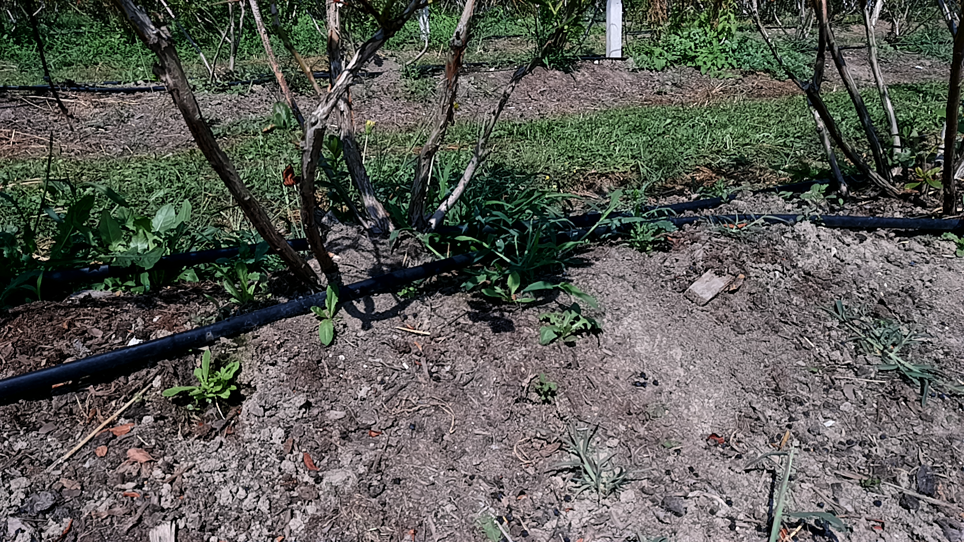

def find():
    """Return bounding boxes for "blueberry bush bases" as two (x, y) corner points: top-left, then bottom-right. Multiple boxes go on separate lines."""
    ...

(233, 160), (518, 324)
(524, 30), (576, 70)
(877, 17), (918, 43)
(795, 99), (962, 232)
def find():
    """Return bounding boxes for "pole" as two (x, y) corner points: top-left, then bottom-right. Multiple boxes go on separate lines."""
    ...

(605, 3), (627, 59)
